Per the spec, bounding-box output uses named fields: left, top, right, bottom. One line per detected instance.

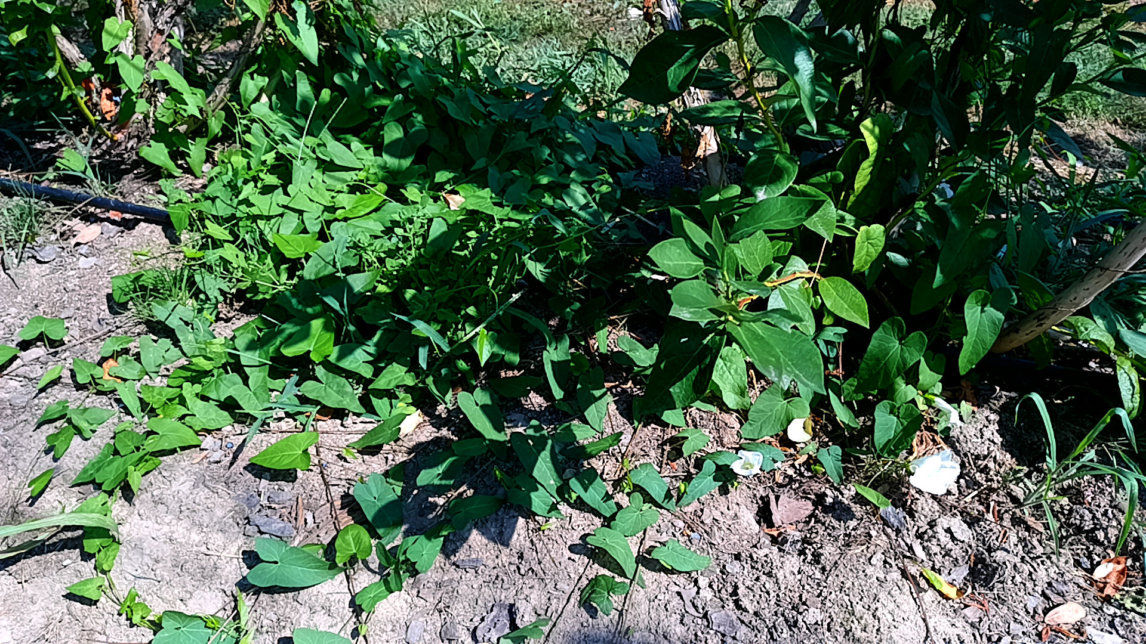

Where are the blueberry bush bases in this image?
left=660, top=51, right=1133, bottom=454
left=8, top=1, right=313, bottom=214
